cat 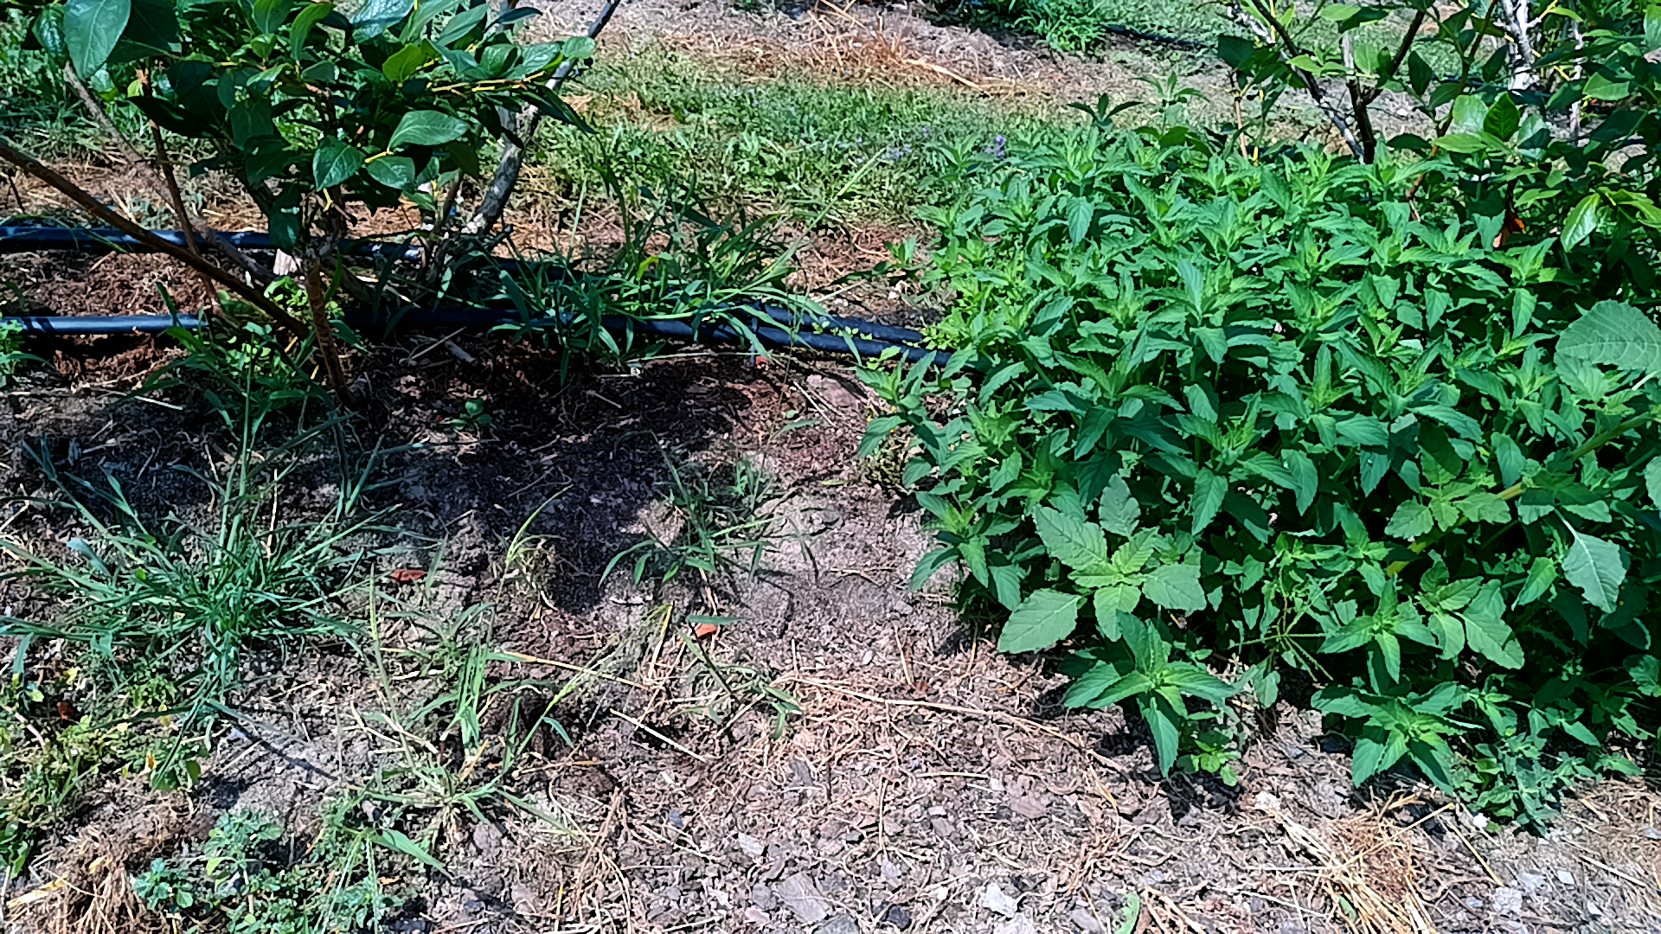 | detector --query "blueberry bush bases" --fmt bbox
[1271,33,1631,370]
[125,129,569,459]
